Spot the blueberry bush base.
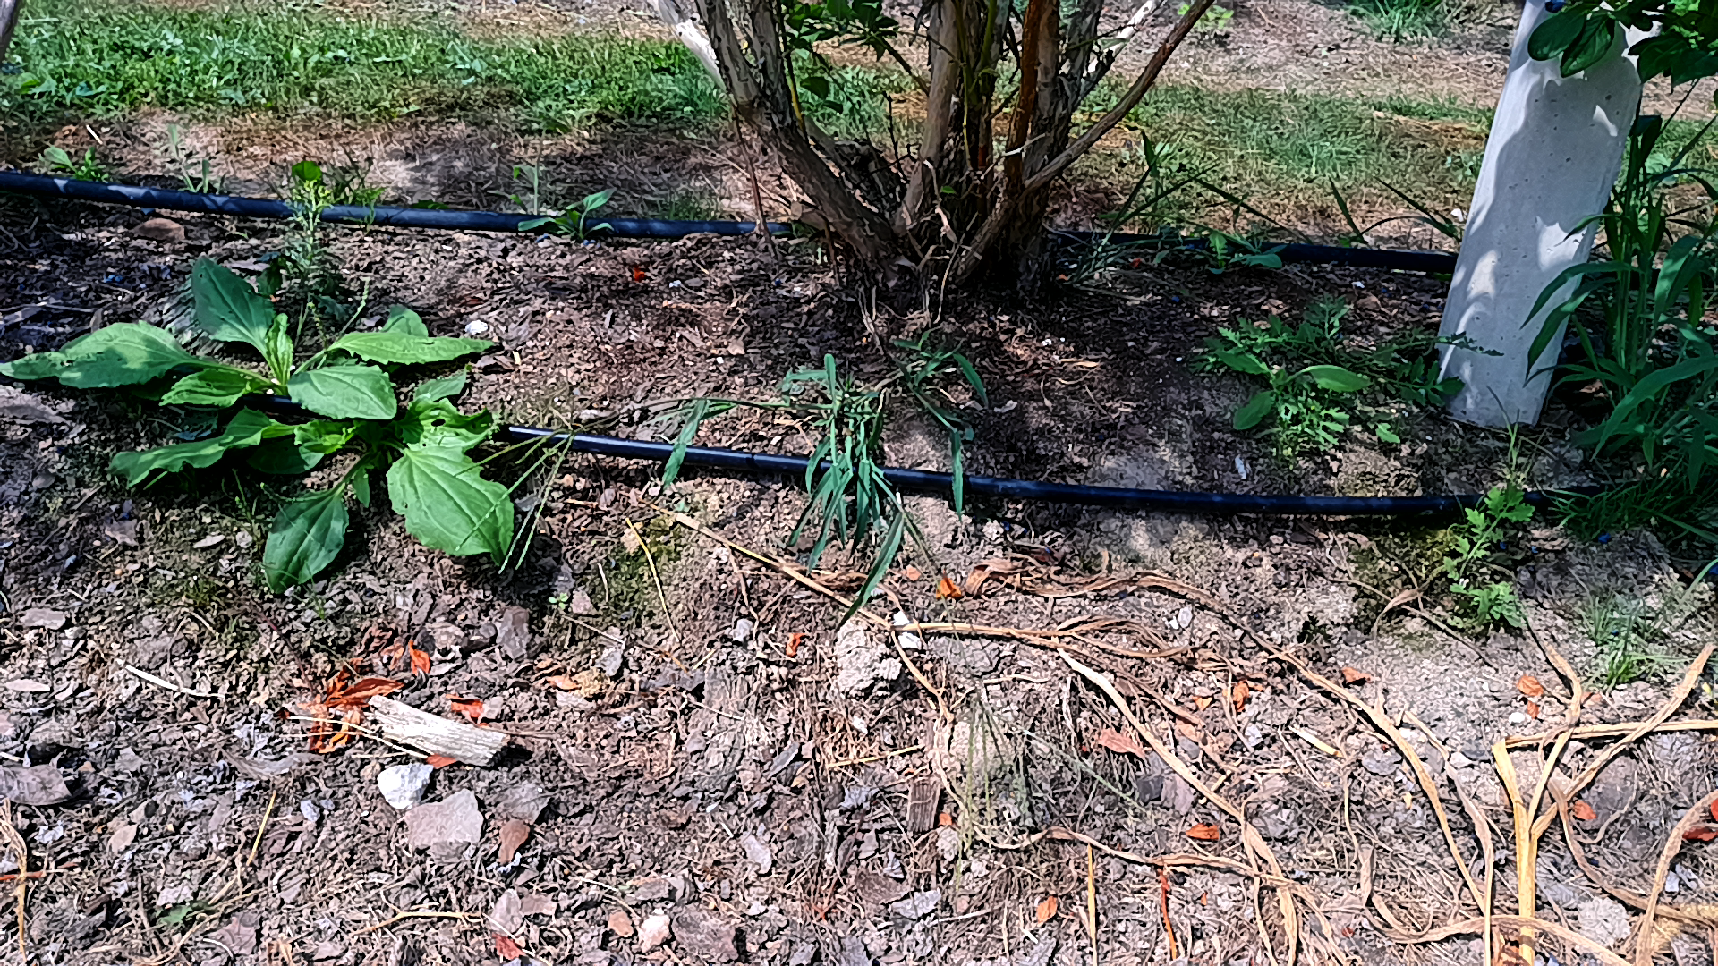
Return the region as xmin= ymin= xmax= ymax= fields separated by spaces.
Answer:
xmin=711 ymin=24 xmax=1185 ymax=357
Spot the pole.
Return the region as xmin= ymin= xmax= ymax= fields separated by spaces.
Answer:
xmin=1420 ymin=27 xmax=1643 ymax=439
